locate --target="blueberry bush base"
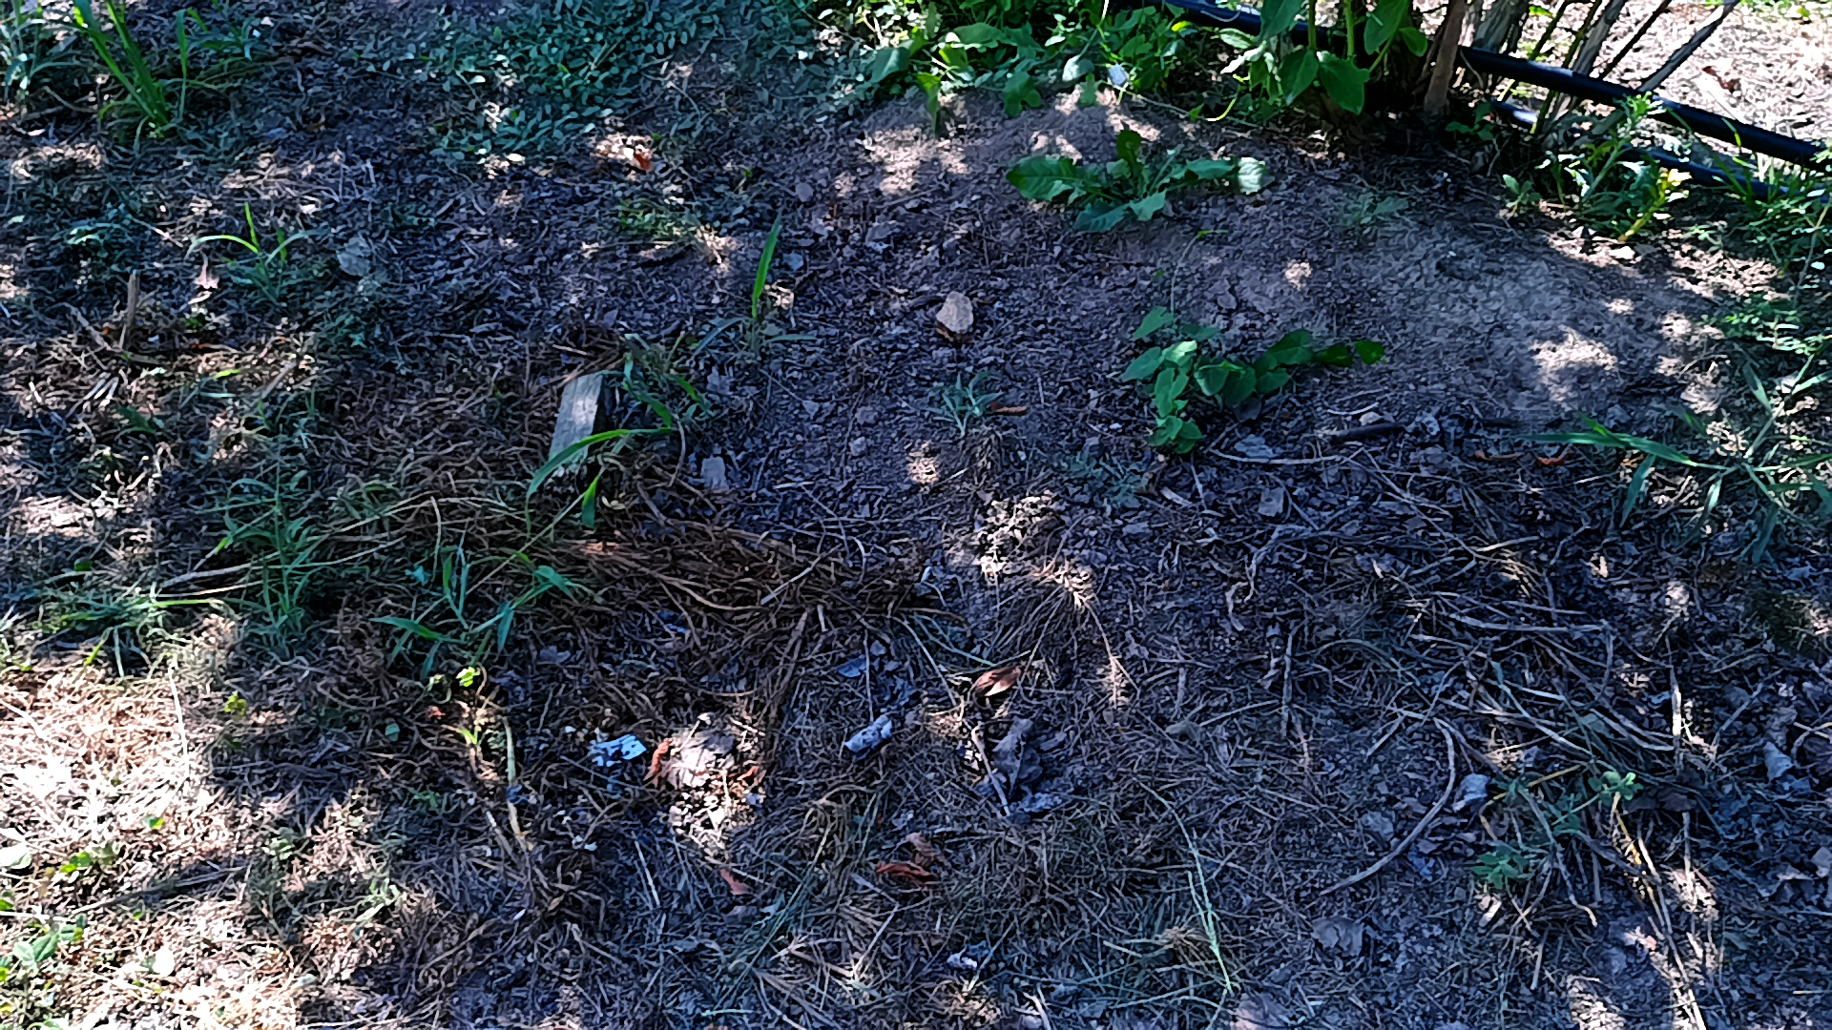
[1290,1,1700,258]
